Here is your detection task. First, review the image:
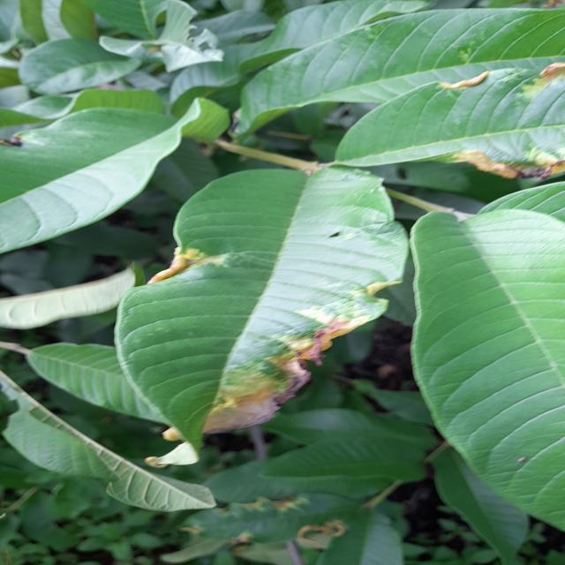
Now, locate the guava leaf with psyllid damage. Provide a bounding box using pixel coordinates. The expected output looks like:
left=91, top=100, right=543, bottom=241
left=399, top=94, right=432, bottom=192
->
left=121, top=146, right=411, bottom=478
